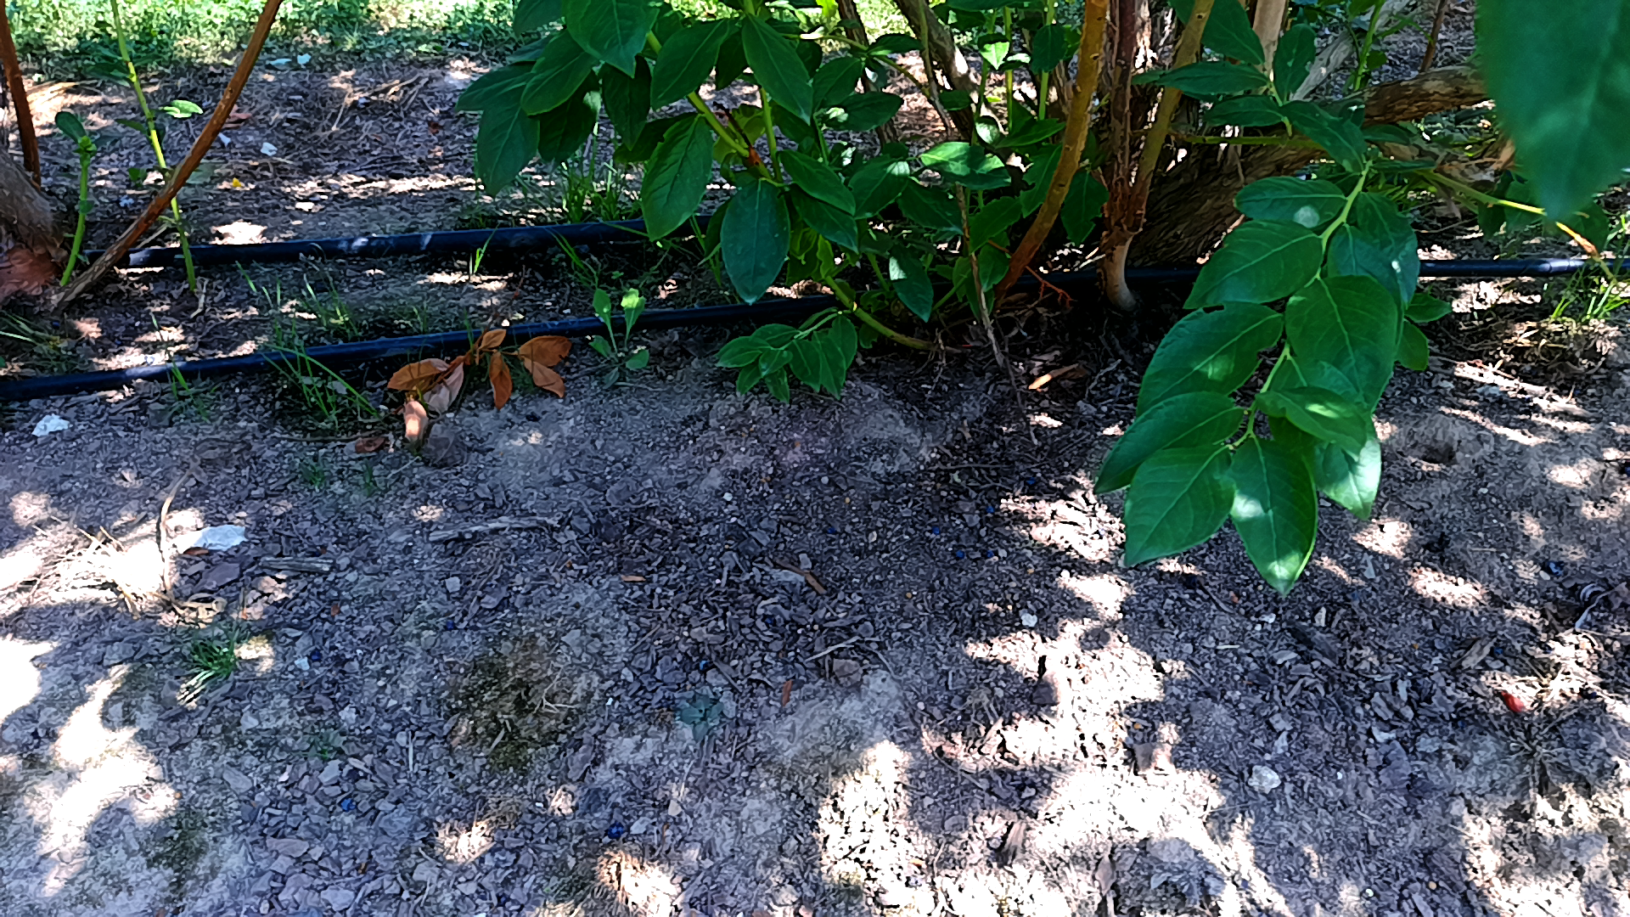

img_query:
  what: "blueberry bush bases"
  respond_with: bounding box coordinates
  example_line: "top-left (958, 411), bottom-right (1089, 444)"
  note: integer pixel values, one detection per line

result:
top-left (0, 54), bottom-right (250, 380)
top-left (732, 29), bottom-right (1426, 440)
